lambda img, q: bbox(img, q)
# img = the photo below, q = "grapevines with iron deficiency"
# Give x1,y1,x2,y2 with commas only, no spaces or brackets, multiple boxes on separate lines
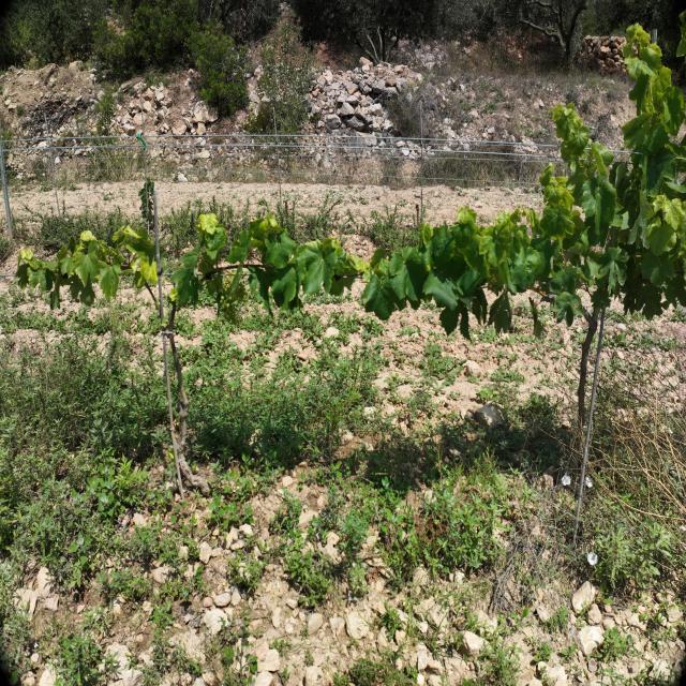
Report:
366,58,686,532
2,202,364,531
